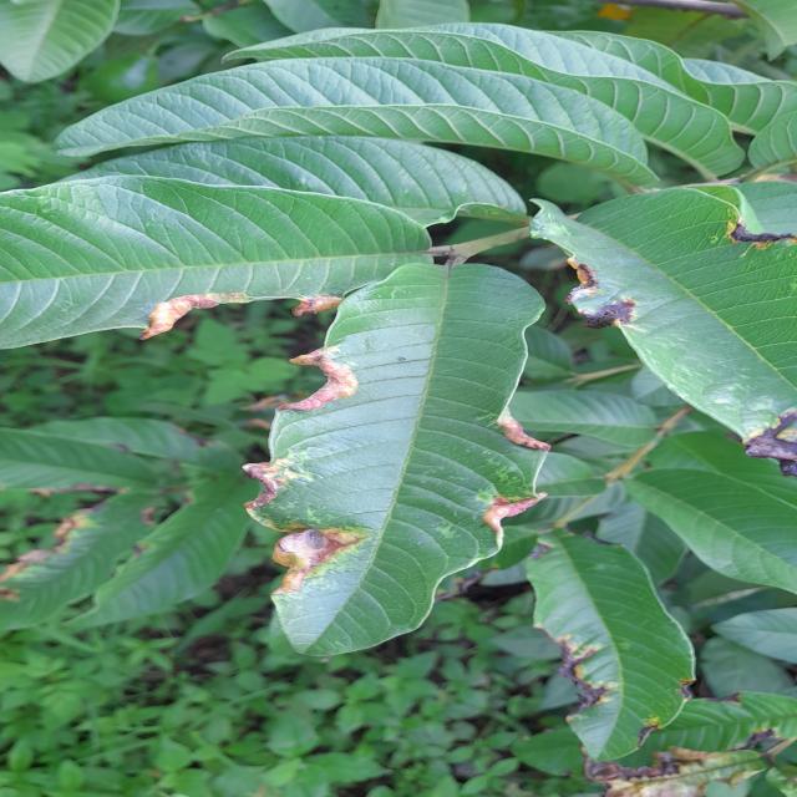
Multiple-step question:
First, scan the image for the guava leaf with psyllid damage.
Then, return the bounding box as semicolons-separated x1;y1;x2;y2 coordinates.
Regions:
252;248;577;677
